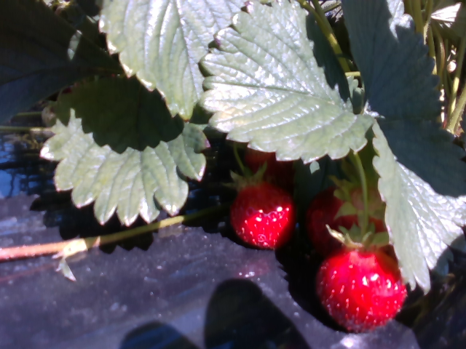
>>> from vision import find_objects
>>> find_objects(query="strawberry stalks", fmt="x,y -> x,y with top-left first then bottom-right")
230,138 -> 262,206
348,153 -> 377,278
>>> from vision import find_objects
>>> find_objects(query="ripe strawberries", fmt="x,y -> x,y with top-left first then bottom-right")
333,174 -> 395,236
228,174 -> 297,250
240,116 -> 302,168
310,235 -> 412,329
